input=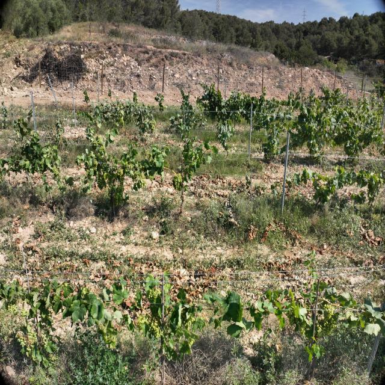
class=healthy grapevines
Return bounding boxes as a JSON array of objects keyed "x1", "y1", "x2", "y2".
[
  {"x1": 112, "y1": 269, "x2": 245, "y2": 381},
  {"x1": 0, "y1": 268, "x2": 114, "y2": 370},
  {"x1": 244, "y1": 272, "x2": 385, "y2": 383}
]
